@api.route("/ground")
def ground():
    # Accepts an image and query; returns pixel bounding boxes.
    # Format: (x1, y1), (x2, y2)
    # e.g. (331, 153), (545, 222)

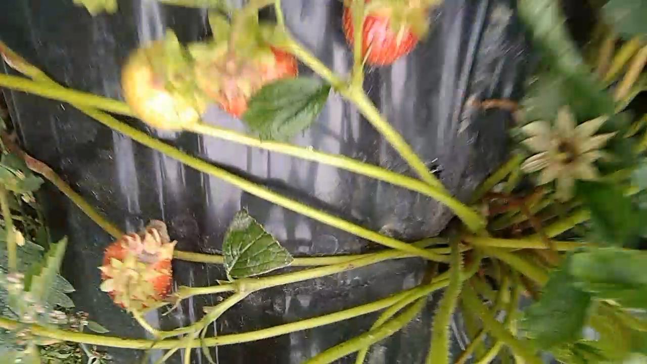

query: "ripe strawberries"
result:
(217, 42), (299, 119)
(95, 230), (177, 311)
(334, 0), (430, 70)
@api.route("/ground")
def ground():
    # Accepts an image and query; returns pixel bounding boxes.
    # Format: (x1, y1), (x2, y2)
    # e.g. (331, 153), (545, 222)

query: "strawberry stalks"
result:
(122, 287), (186, 340)
(338, 0), (376, 86)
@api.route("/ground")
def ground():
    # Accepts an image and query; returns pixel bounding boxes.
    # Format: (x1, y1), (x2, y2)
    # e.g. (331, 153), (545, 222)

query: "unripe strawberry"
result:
(113, 41), (209, 131)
